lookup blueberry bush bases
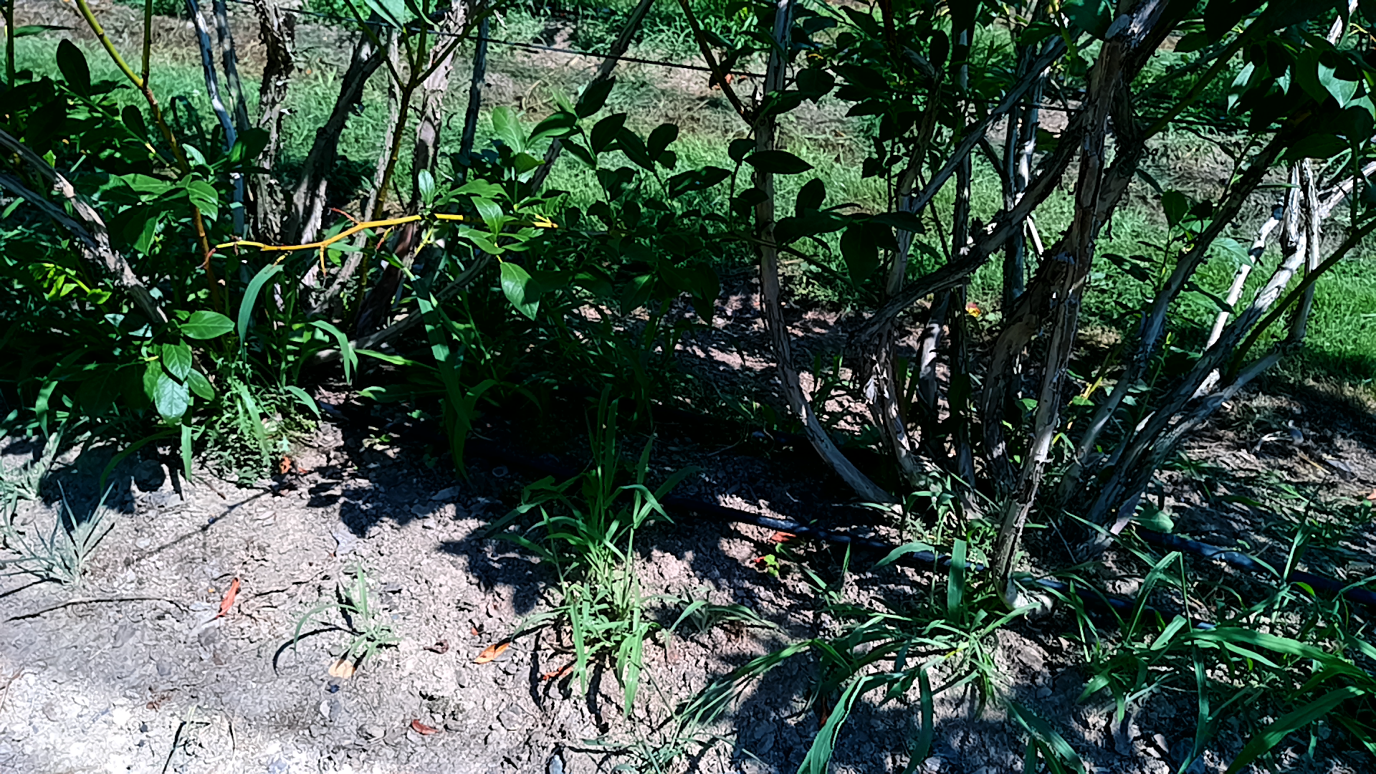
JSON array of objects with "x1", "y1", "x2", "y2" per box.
[
  {"x1": 36, "y1": 117, "x2": 513, "y2": 470},
  {"x1": 768, "y1": 281, "x2": 1240, "y2": 692}
]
